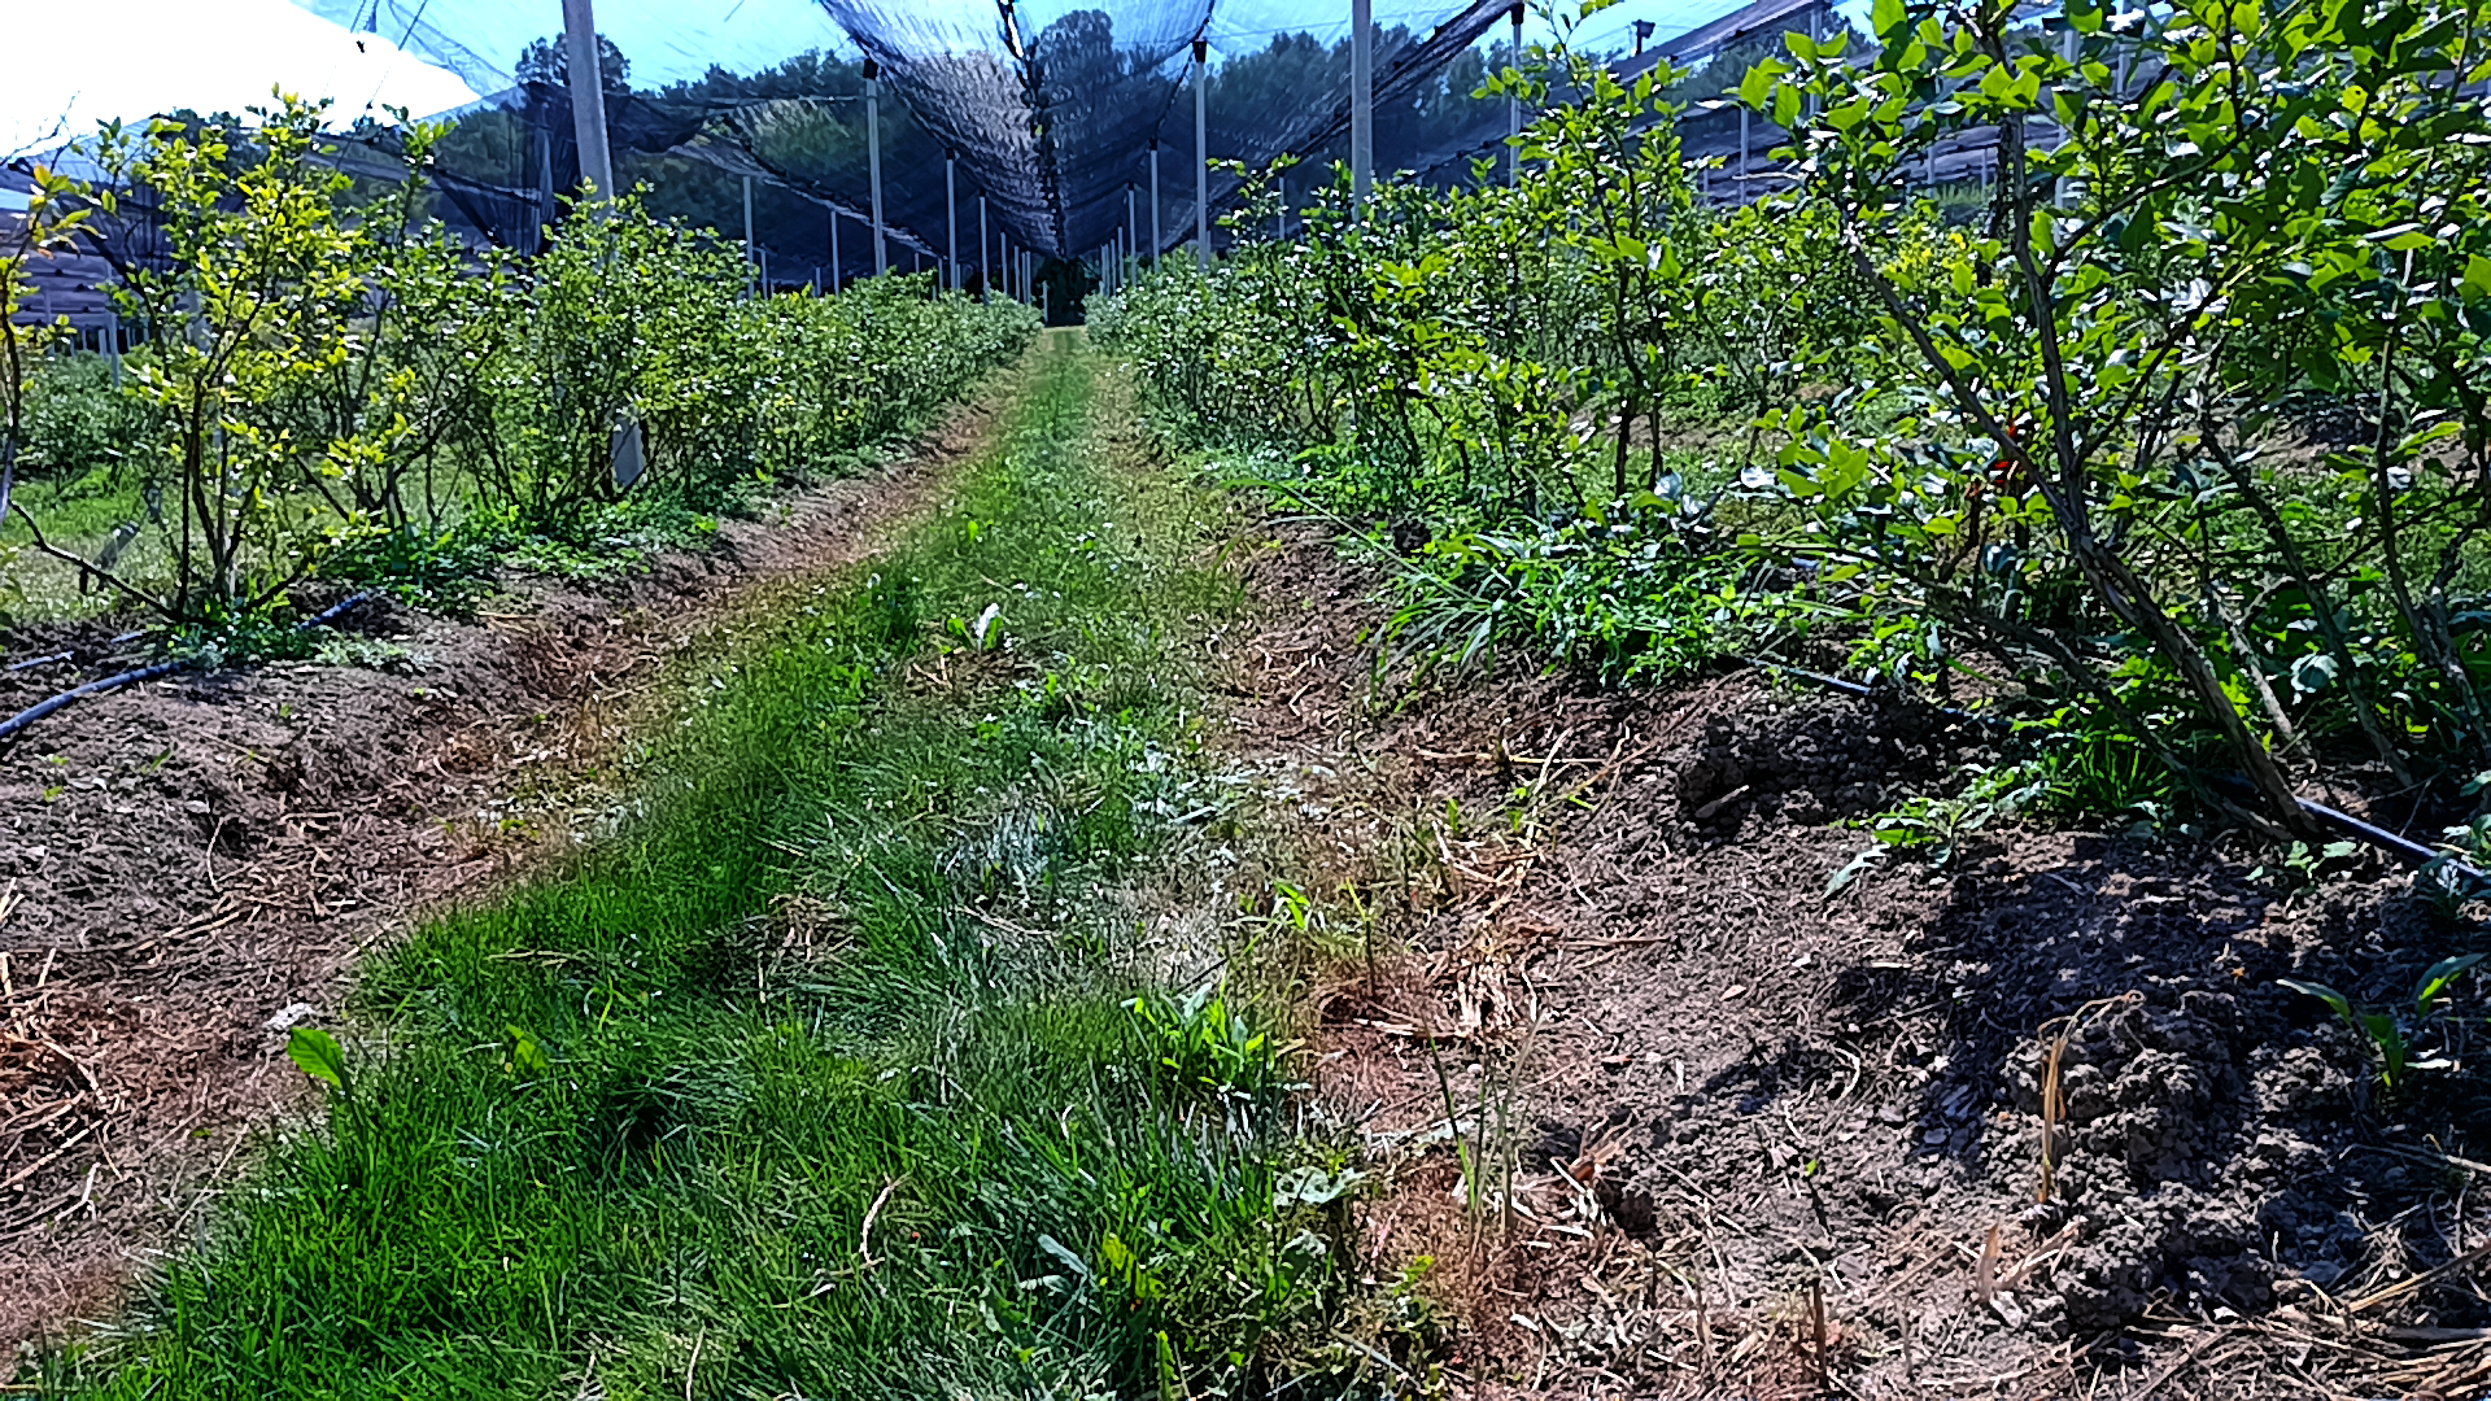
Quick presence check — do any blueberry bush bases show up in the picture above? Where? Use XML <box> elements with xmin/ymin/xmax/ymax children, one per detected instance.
<box><xmin>1974</xmin><ymin>518</ymin><xmax>2489</xmax><ymax>897</ymax></box>
<box><xmin>333</xmin><ymin>463</ymin><xmax>460</xmax><ymax>593</ymax></box>
<box><xmin>51</xmin><ymin>476</ymin><xmax>333</xmax><ymax>697</ymax></box>
<box><xmin>1518</xmin><ymin>426</ymin><xmax>1761</xmax><ymax>661</ymax></box>
<box><xmin>474</xmin><ymin>440</ymin><xmax>617</xmax><ymax>568</ymax></box>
